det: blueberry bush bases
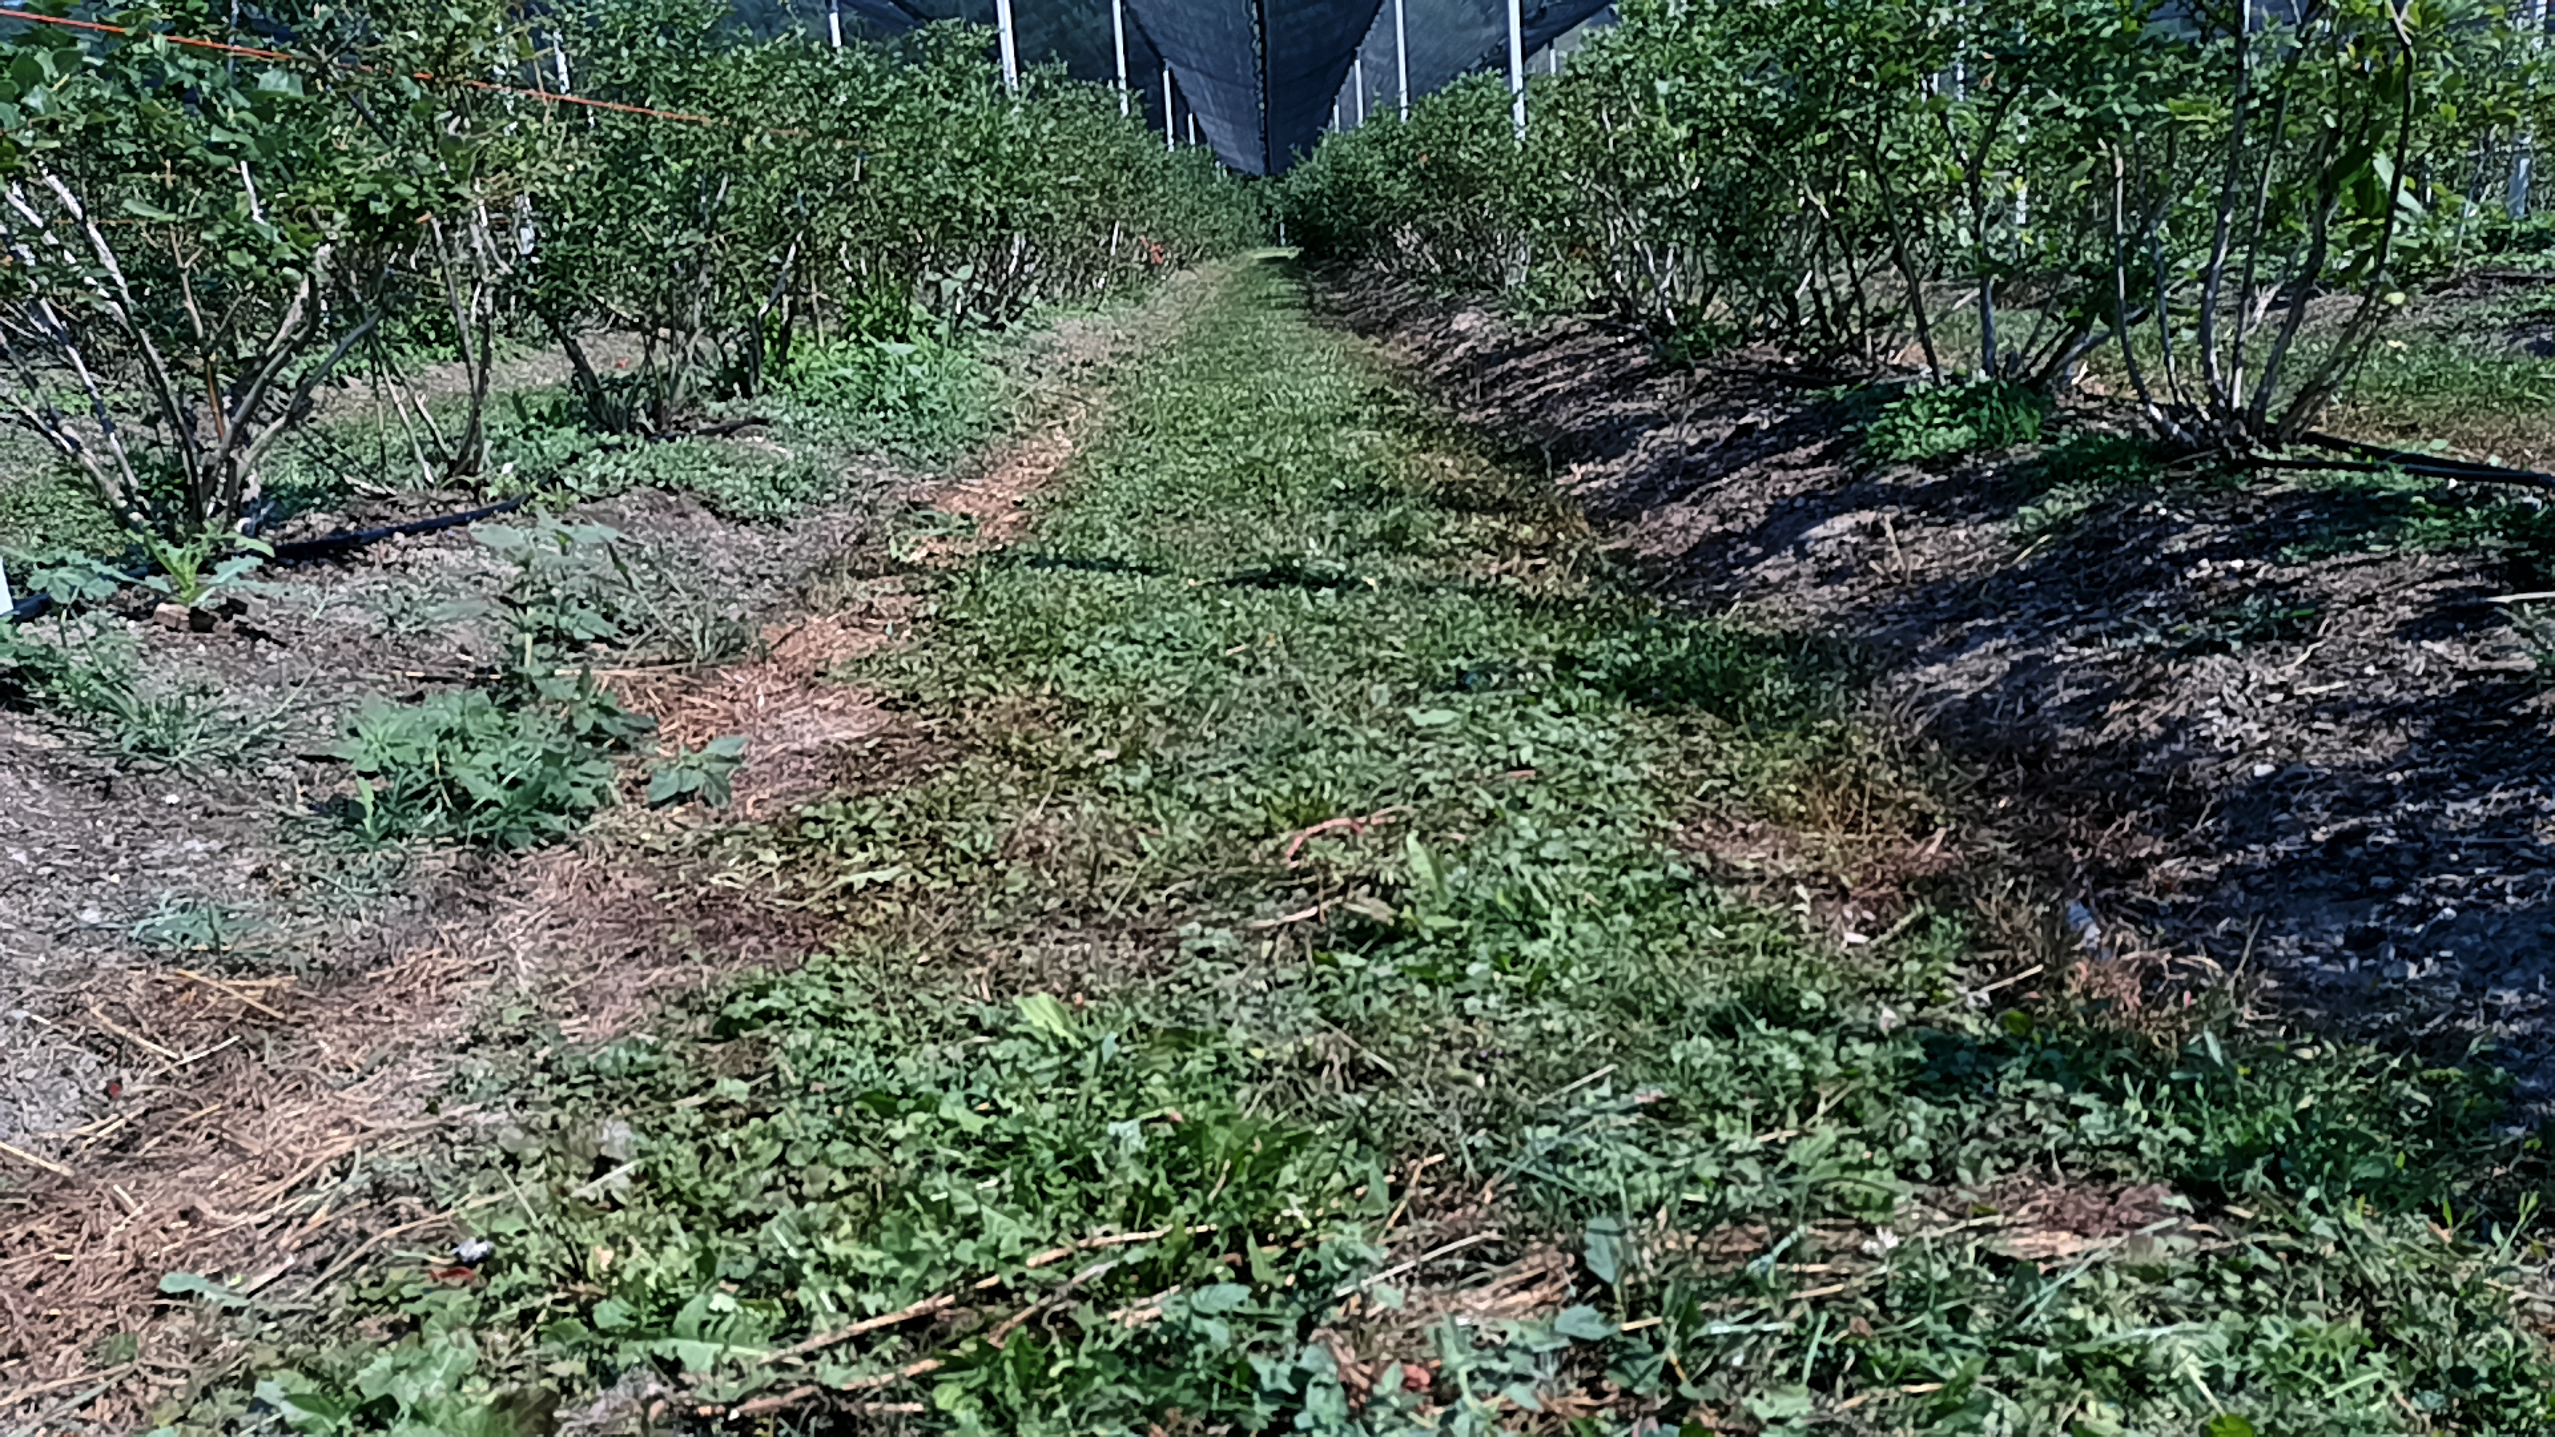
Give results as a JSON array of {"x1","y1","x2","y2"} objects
[
  {"x1": 1771, "y1": 278, "x2": 1904, "y2": 402},
  {"x1": 563, "y1": 350, "x2": 759, "y2": 479},
  {"x1": 720, "y1": 321, "x2": 807, "y2": 426},
  {"x1": 338, "y1": 391, "x2": 520, "y2": 547},
  {"x1": 43, "y1": 391, "x2": 323, "y2": 613},
  {"x1": 1620, "y1": 268, "x2": 1743, "y2": 367},
  {"x1": 1900, "y1": 301, "x2": 2096, "y2": 451},
  {"x1": 2124, "y1": 325, "x2": 2390, "y2": 511}
]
